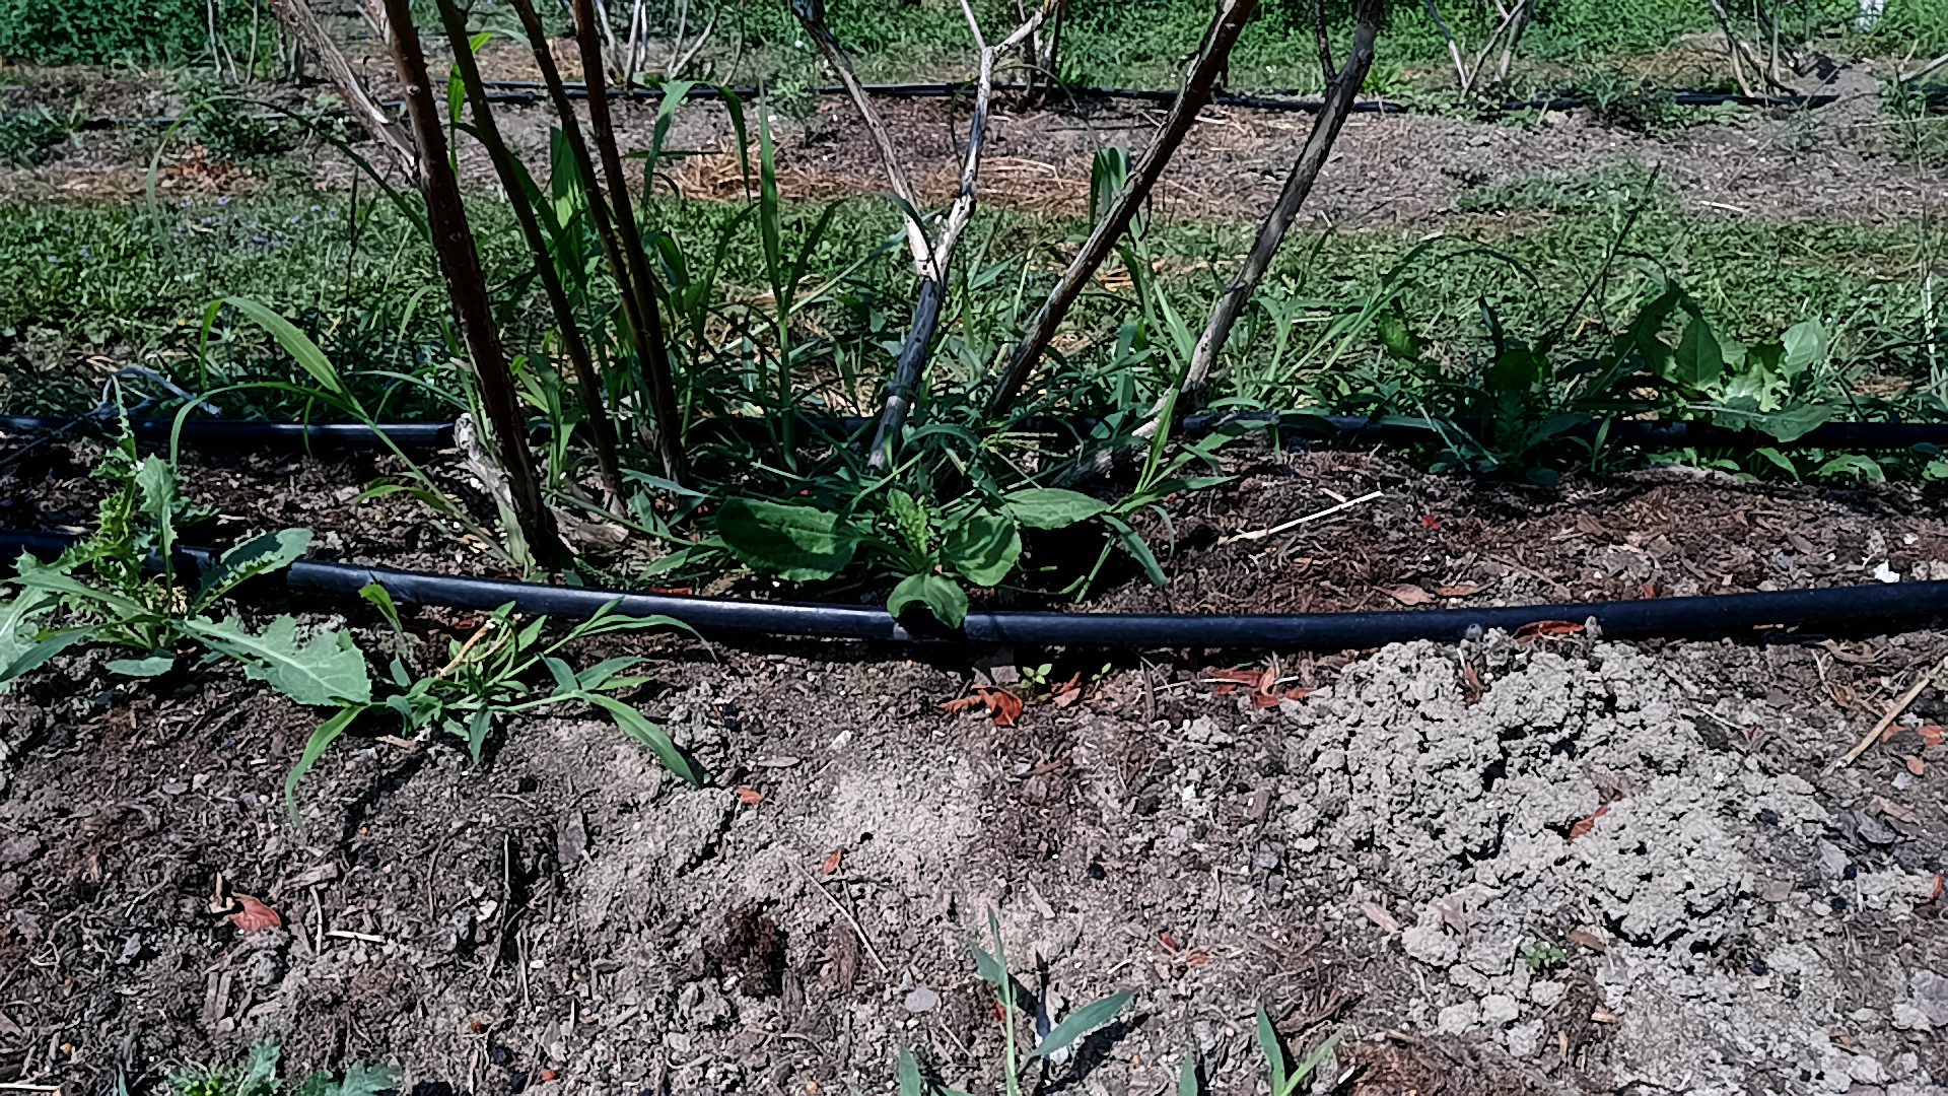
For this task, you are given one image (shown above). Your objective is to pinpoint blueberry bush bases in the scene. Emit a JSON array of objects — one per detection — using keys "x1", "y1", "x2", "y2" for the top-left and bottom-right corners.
[
  {"x1": 1420, "y1": 41, "x2": 1545, "y2": 134},
  {"x1": 186, "y1": 24, "x2": 341, "y2": 113},
  {"x1": 386, "y1": 254, "x2": 1293, "y2": 762},
  {"x1": 1708, "y1": 21, "x2": 1841, "y2": 118},
  {"x1": 938, "y1": 36, "x2": 1075, "y2": 125},
  {"x1": 556, "y1": 19, "x2": 734, "y2": 116}
]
